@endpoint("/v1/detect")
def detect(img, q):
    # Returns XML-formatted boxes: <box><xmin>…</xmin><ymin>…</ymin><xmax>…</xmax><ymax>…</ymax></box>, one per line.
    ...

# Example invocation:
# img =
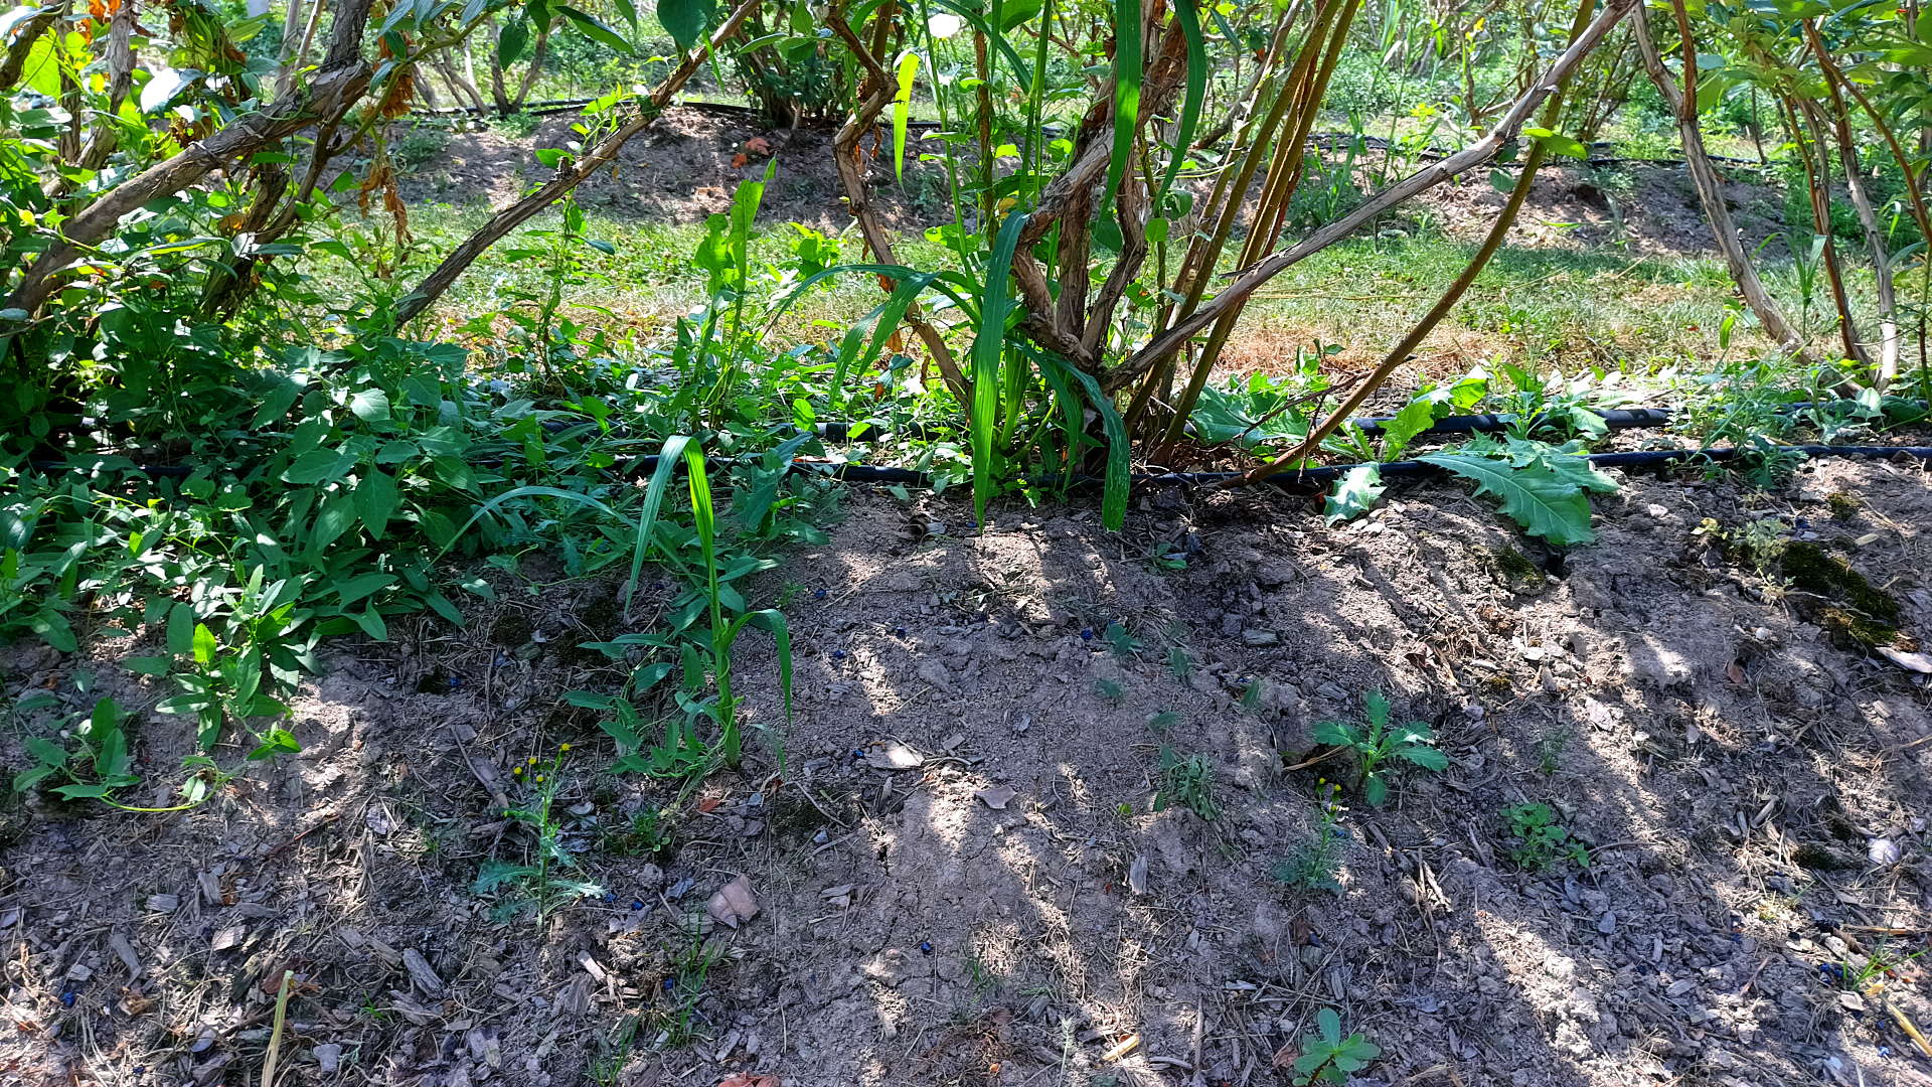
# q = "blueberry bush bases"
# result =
<box><xmin>738</xmin><ymin>58</ymin><xmax>879</xmax><ymax>159</ymax></box>
<box><xmin>868</xmin><ymin>238</ymin><xmax>1410</xmax><ymax>572</ymax></box>
<box><xmin>0</xmin><ymin>207</ymin><xmax>338</xmax><ymax>553</ymax></box>
<box><xmin>452</xmin><ymin>72</ymin><xmax>543</xmax><ymax>136</ymax></box>
<box><xmin>1723</xmin><ymin>248</ymin><xmax>1932</xmax><ymax>487</ymax></box>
